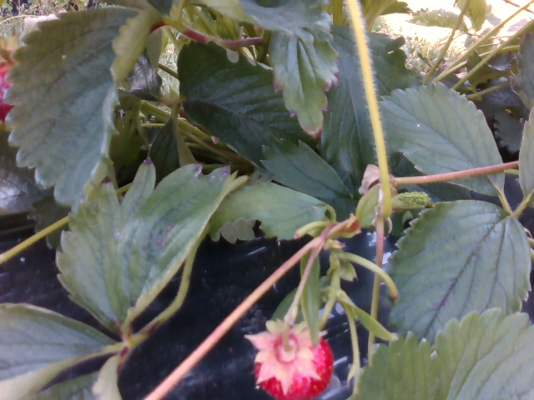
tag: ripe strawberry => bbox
[247,330,336,400]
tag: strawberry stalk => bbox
[274,275,314,358]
